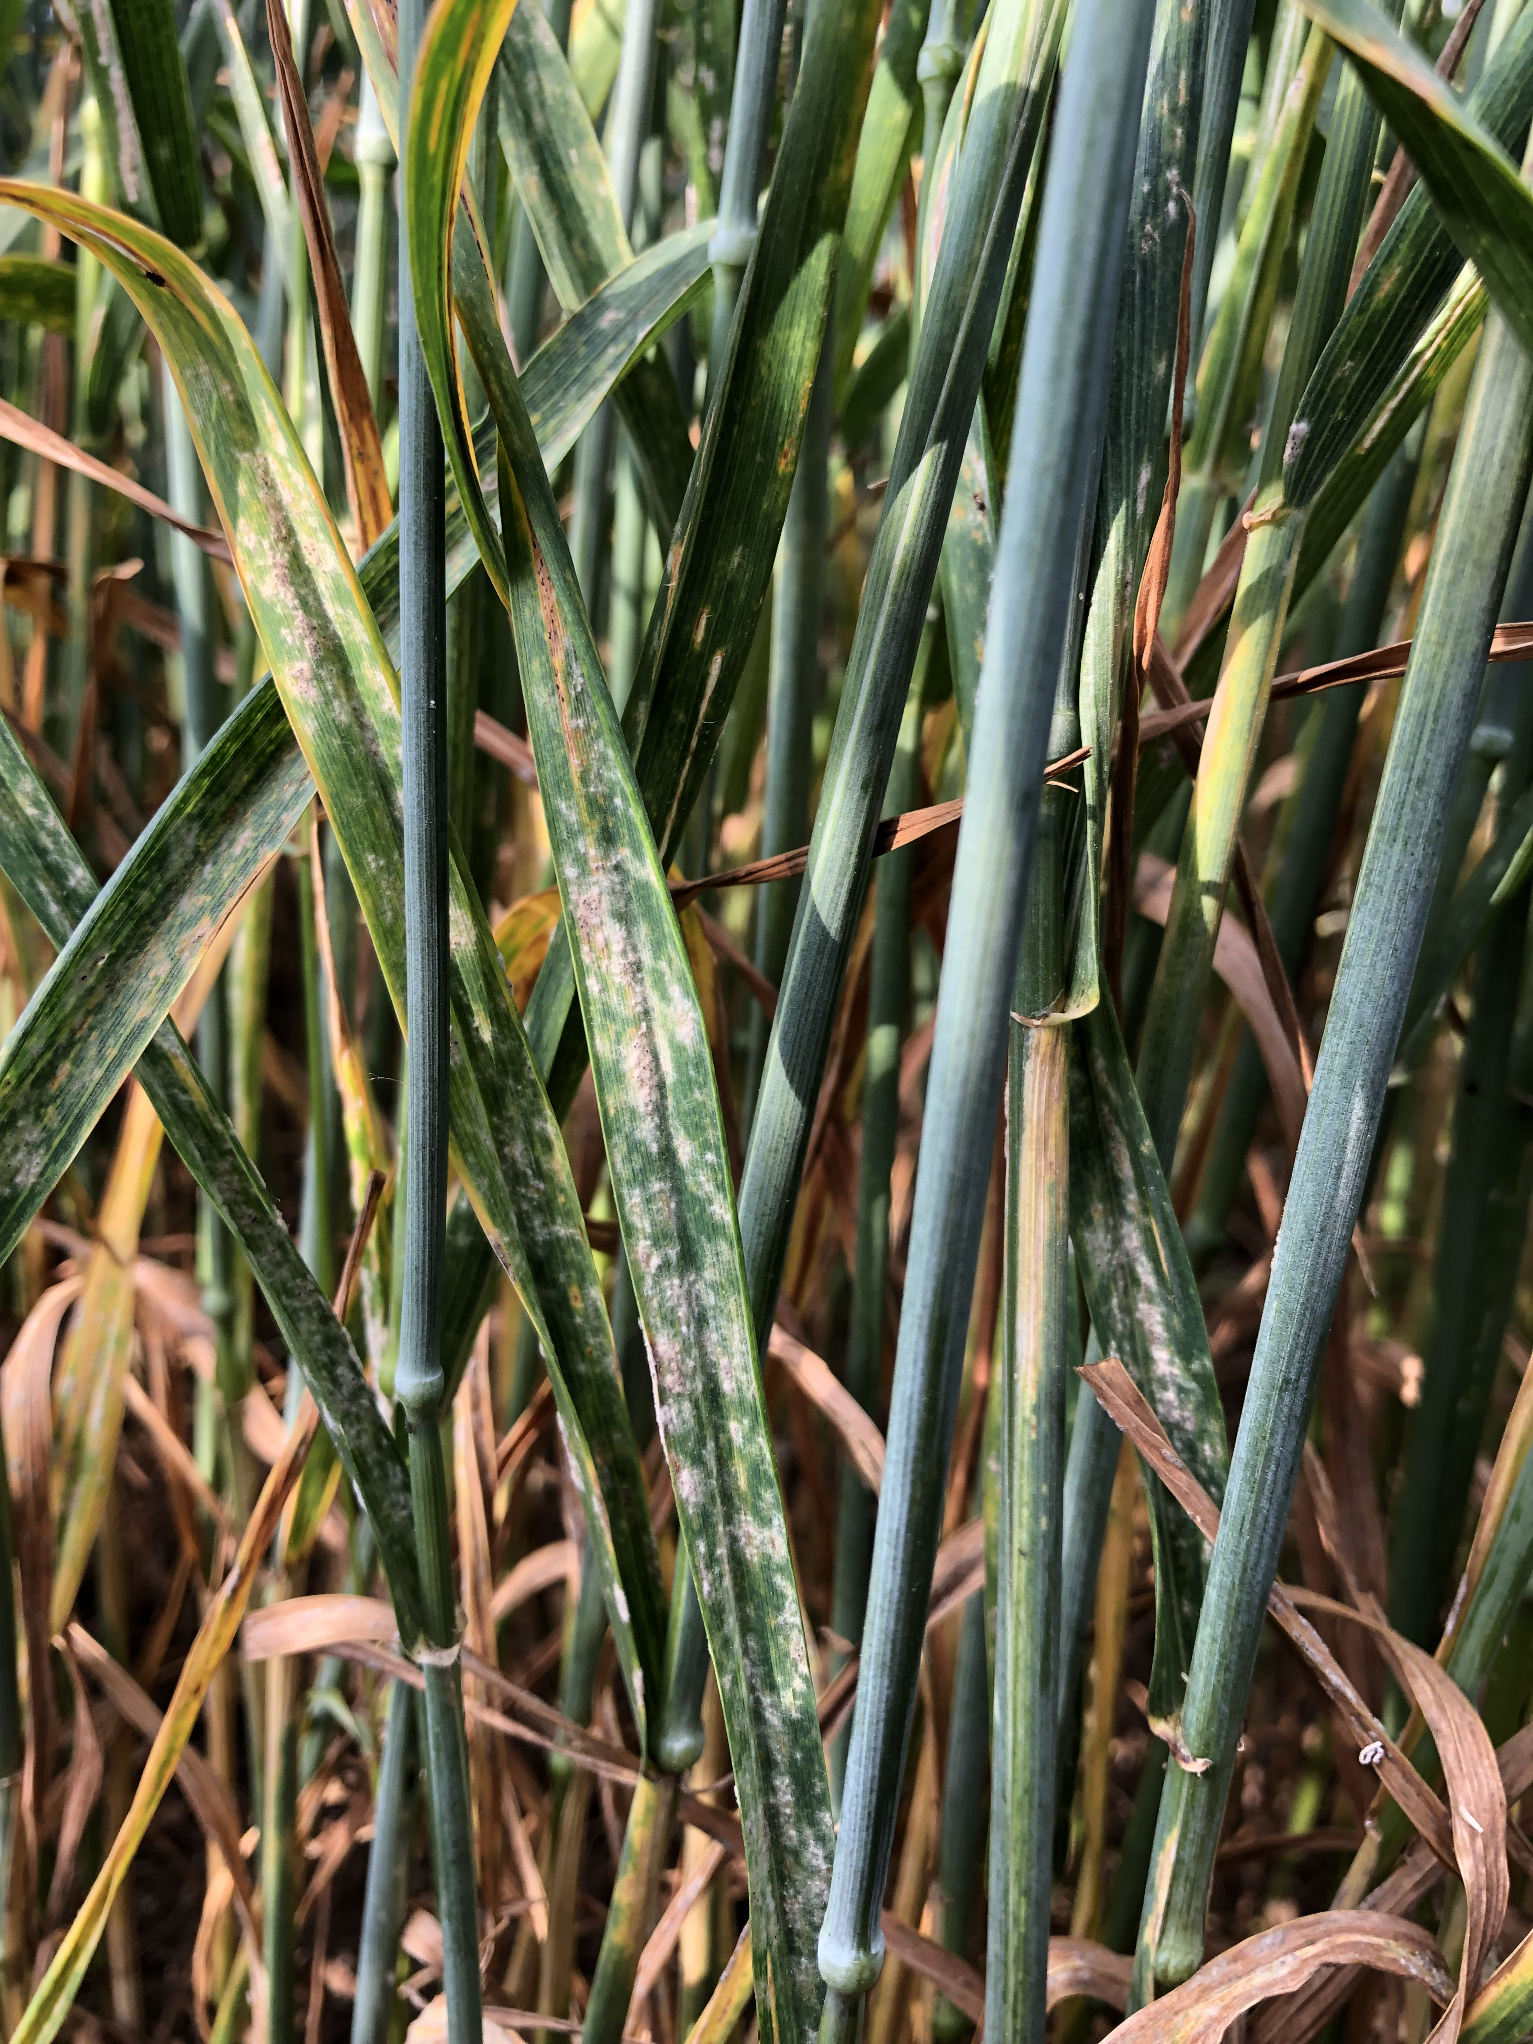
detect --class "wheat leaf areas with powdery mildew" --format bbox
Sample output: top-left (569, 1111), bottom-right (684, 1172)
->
top-left (1073, 1026), bottom-right (1253, 1505)
top-left (448, 15), bottom-right (625, 209)
top-left (141, 316), bottom-right (440, 883)
top-left (1115, 1), bottom-right (1191, 517)
top-left (617, 1), bottom-right (744, 187)
top-left (1, 736), bottom-right (107, 925)
top-left (360, 919), bottom-right (684, 1683)
top-left (48, 1), bottom-right (186, 204)
top-left (3, 700), bottom-right (391, 1260)
top-left (496, 624), bottom-right (867, 1992)
top-left (85, 1018), bottom-right (425, 1525)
